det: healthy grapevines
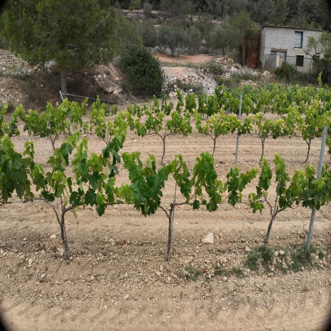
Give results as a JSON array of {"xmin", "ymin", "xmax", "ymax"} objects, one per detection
[
  {"xmin": 243, "ymin": 154, "xmax": 331, "ymax": 259},
  {"xmin": 0, "ymin": 132, "xmax": 123, "ymax": 272},
  {"xmin": 121, "ymin": 151, "xmax": 245, "ymax": 269}
]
